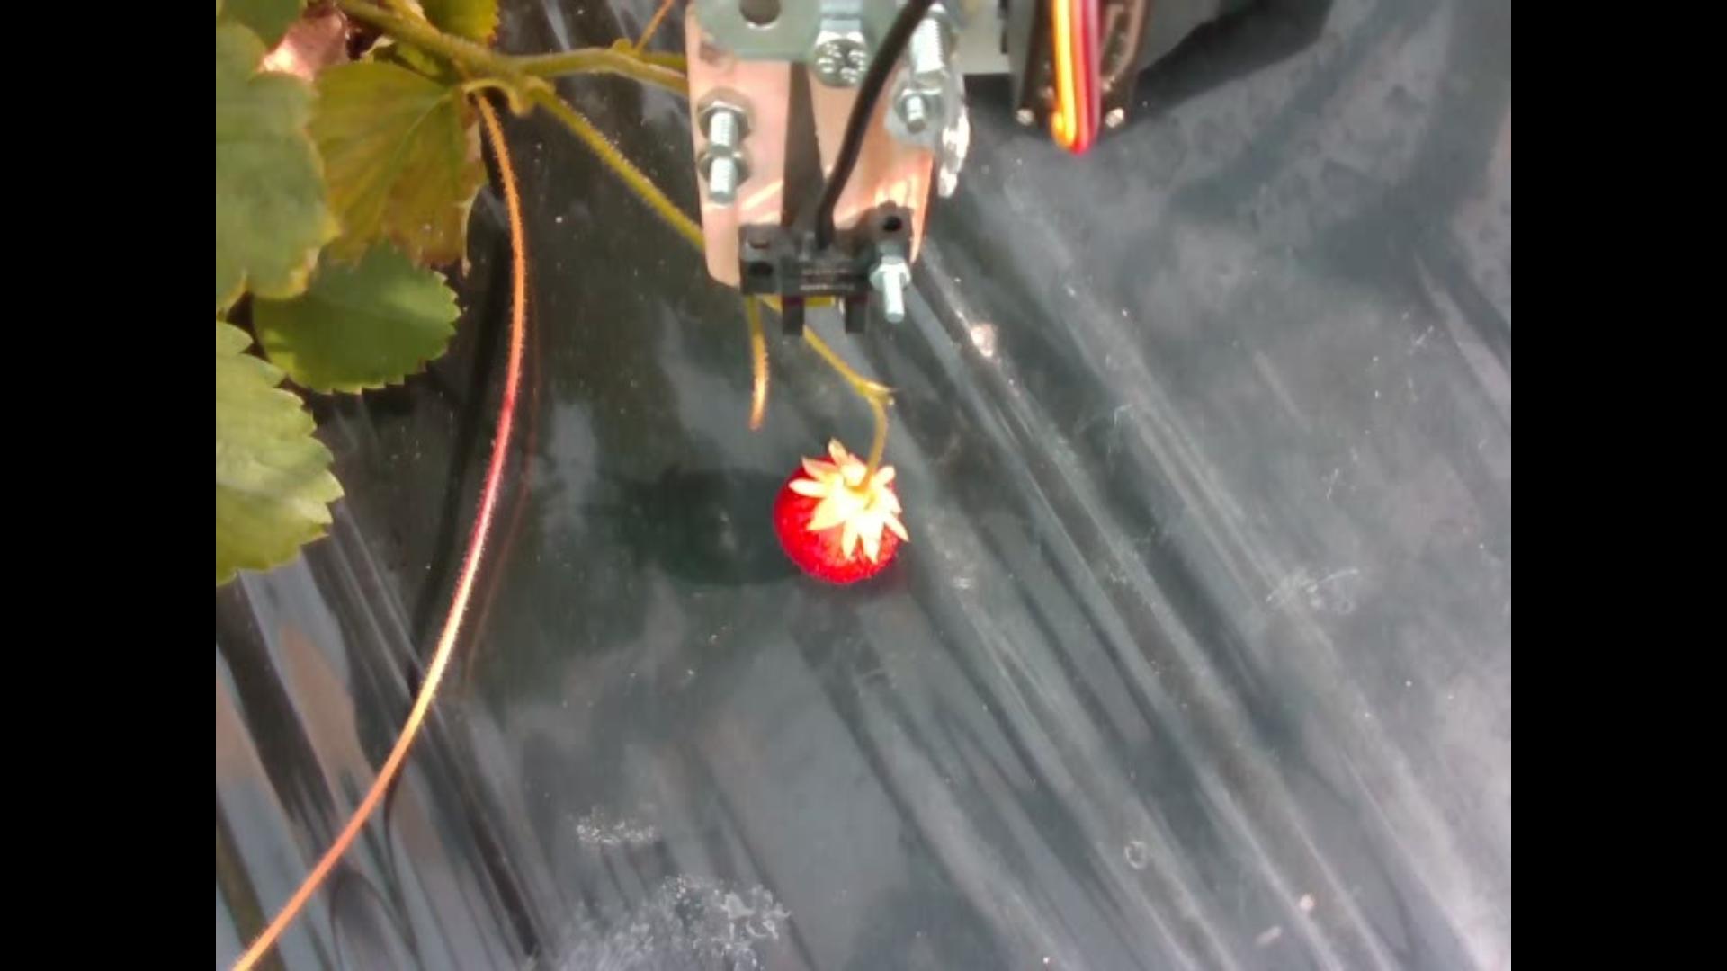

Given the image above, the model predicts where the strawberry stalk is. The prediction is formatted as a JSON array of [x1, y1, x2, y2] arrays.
[[820, 371, 903, 509]]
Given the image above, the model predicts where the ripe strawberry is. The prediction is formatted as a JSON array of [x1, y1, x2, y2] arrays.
[[764, 459, 922, 580]]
